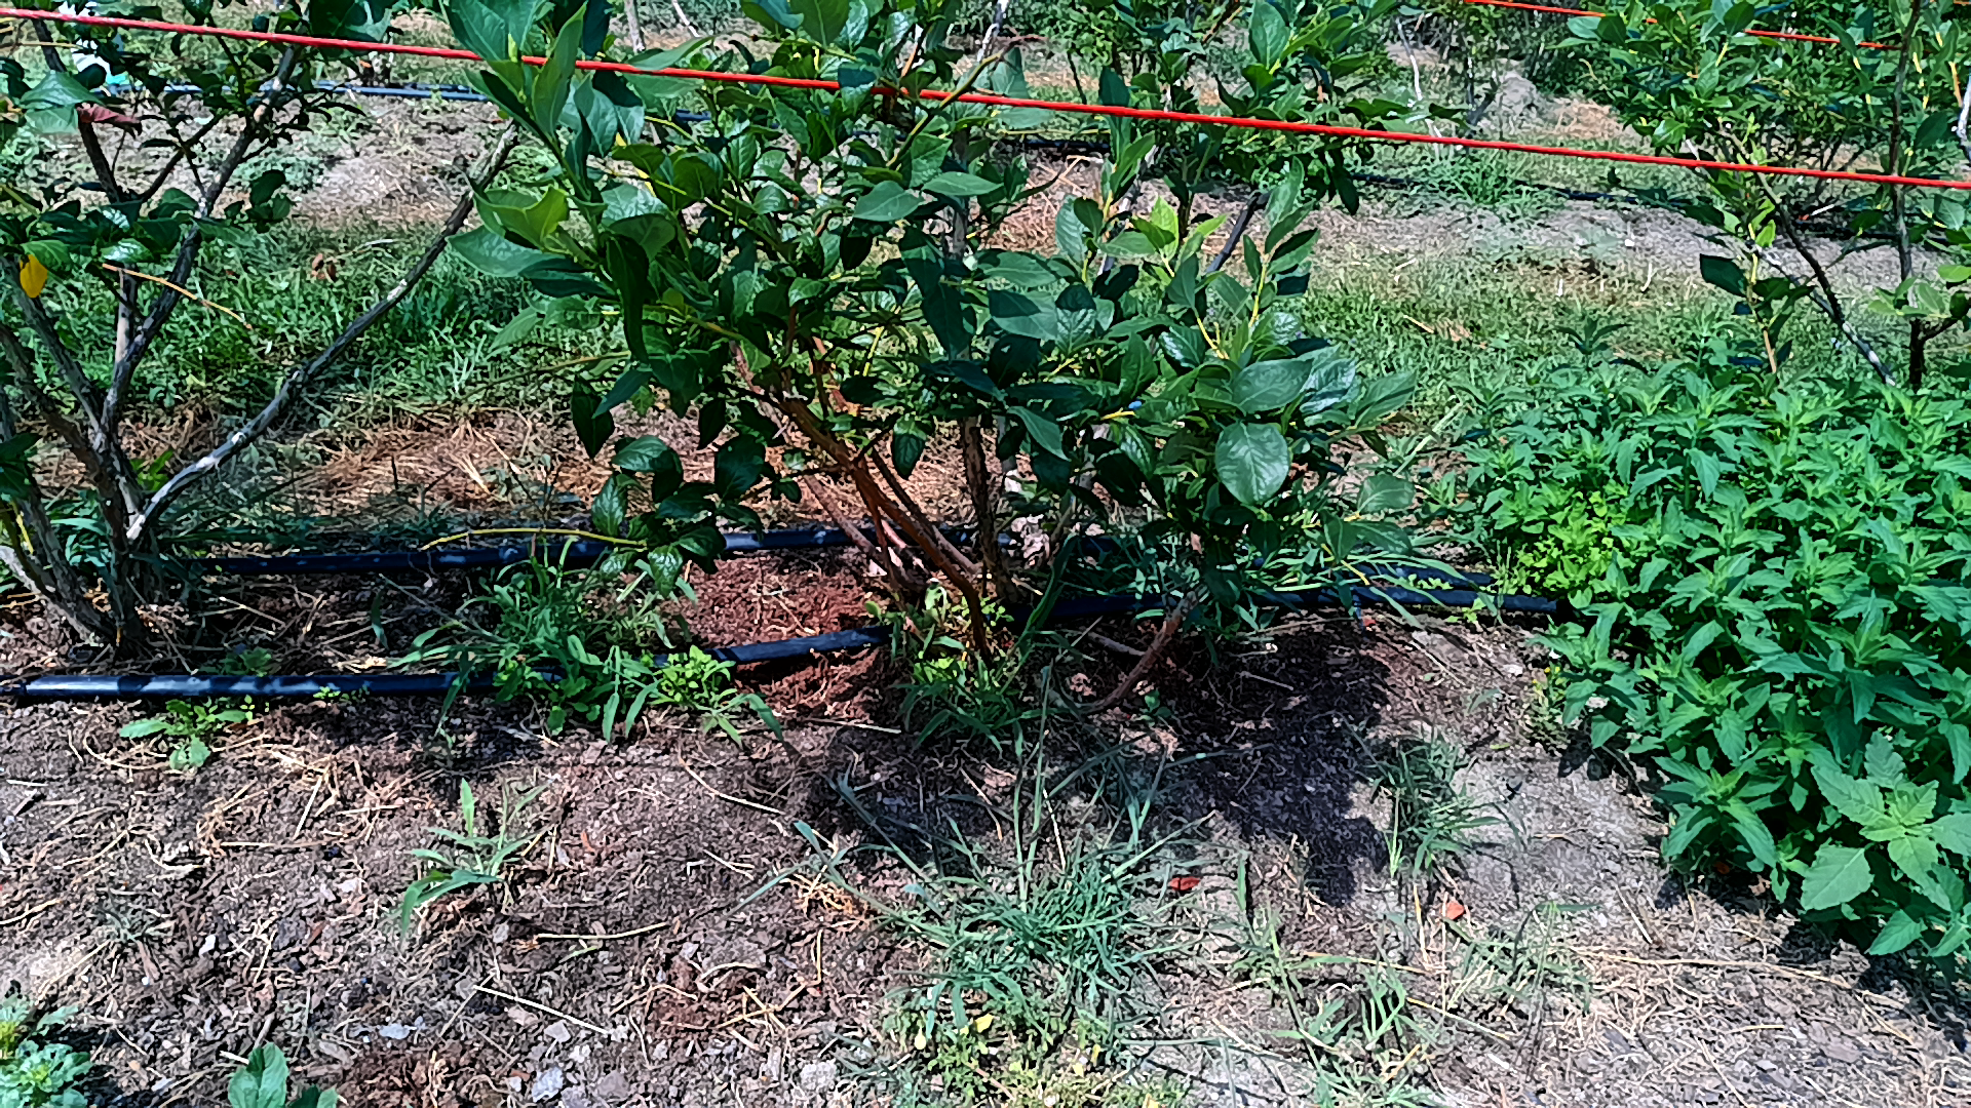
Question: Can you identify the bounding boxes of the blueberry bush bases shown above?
[1742,231,1971,582]
[744,314,1254,759]
[2,409,288,711]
